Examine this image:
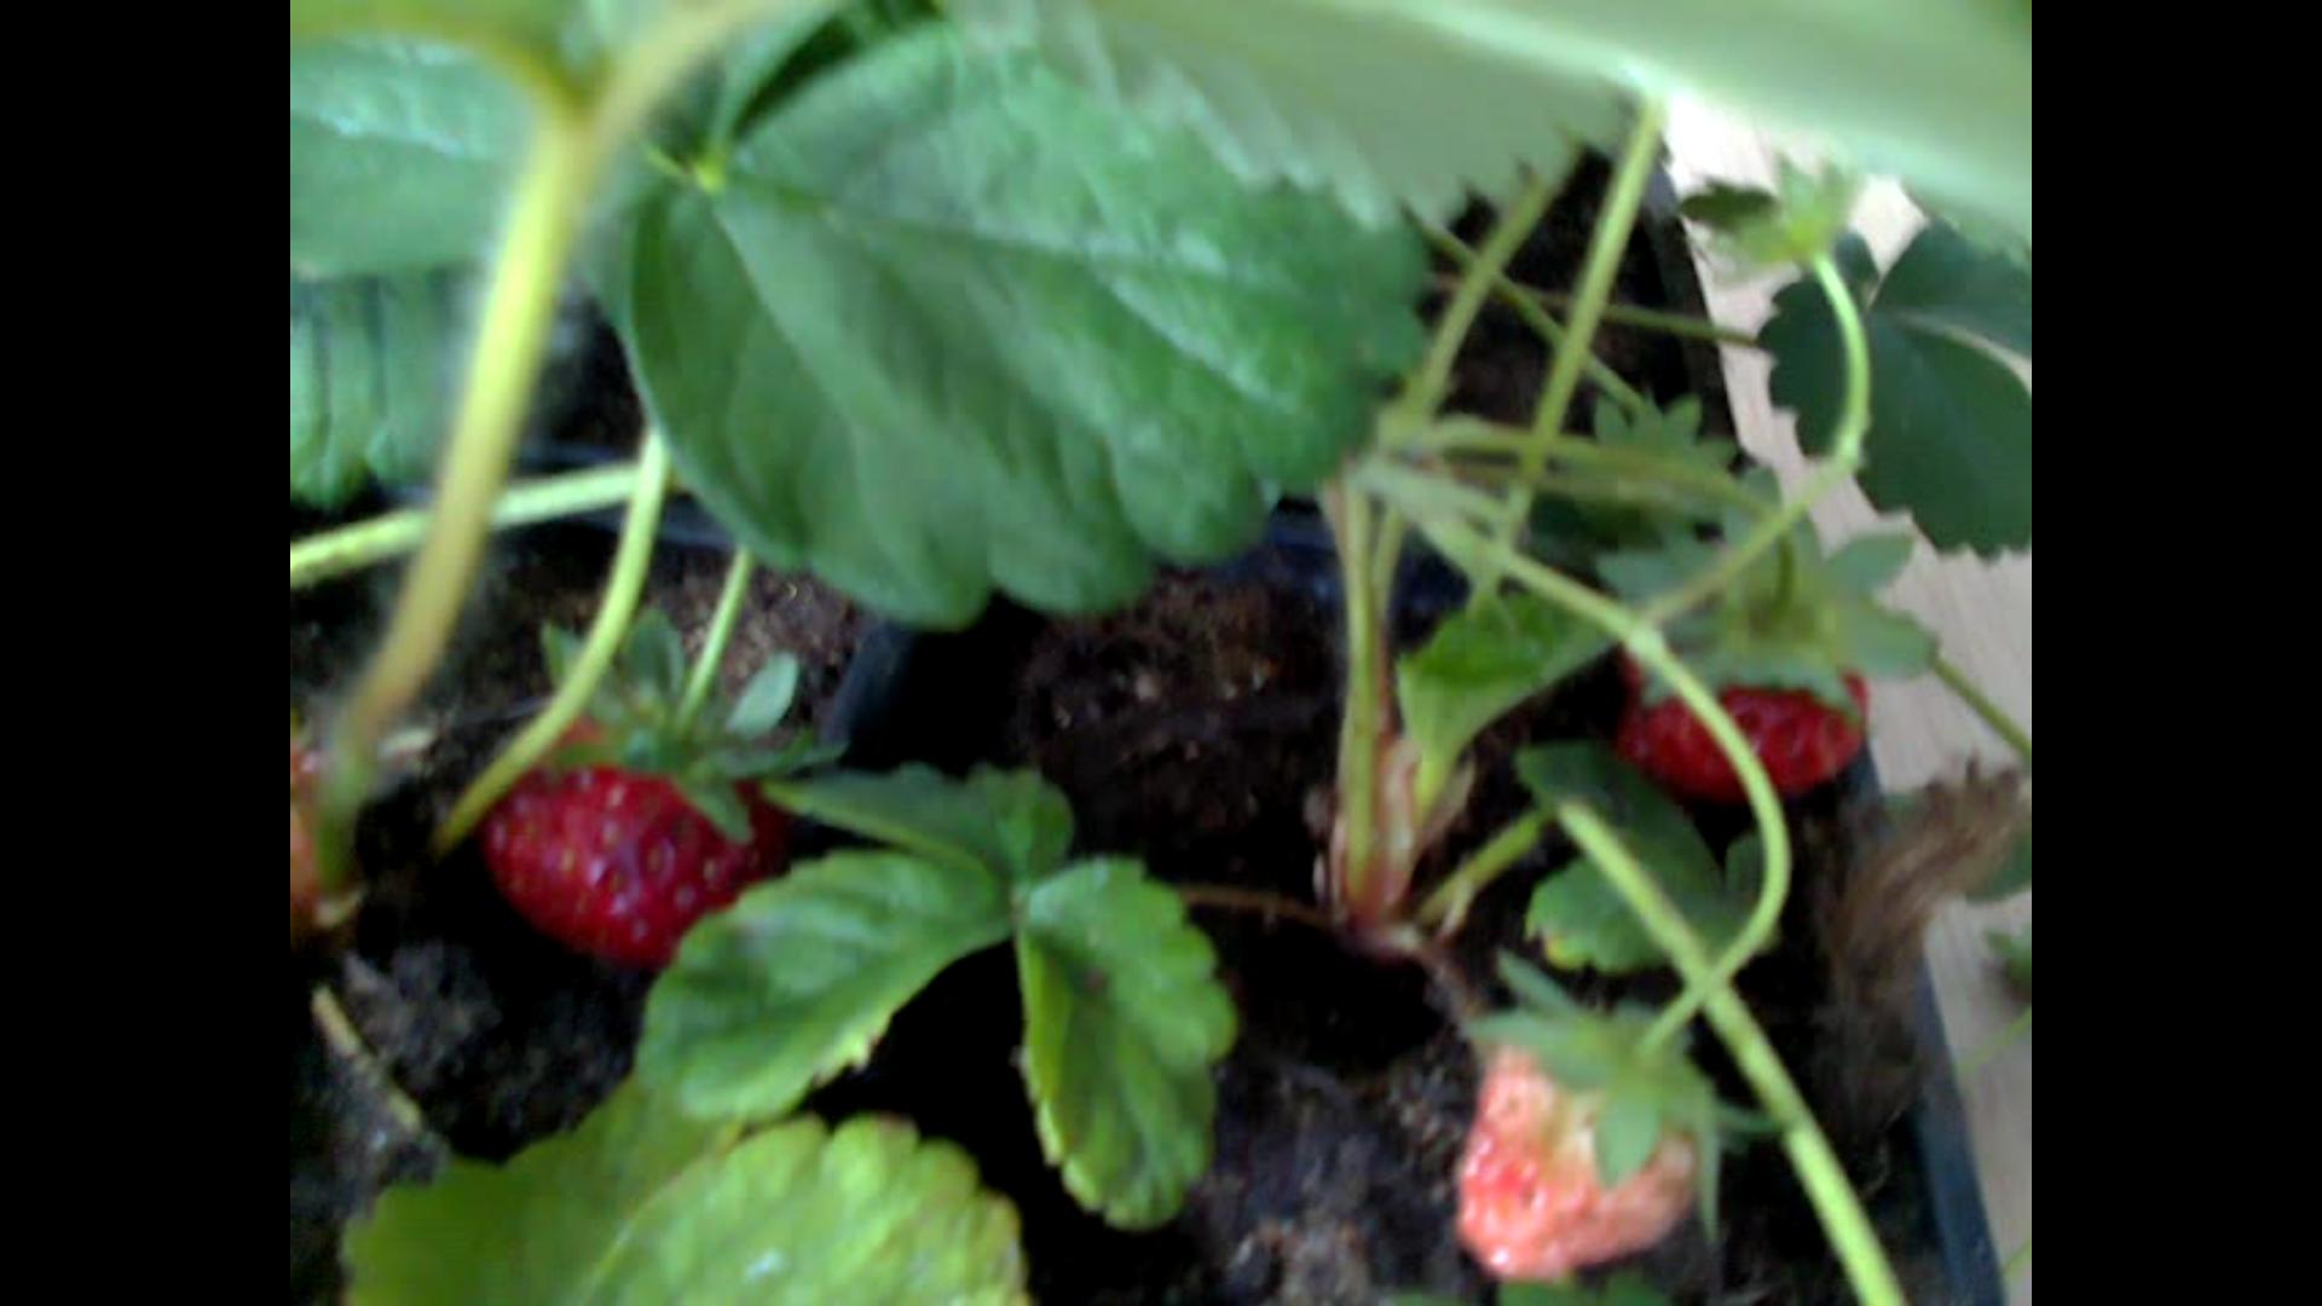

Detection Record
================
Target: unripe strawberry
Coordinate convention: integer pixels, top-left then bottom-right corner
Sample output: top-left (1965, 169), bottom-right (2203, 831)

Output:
top-left (1385, 966), bottom-right (1752, 1306)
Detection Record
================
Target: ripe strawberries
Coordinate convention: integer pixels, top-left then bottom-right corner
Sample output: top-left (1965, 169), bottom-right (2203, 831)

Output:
top-left (1628, 608), bottom-right (1915, 781)
top-left (441, 715), bottom-right (819, 950)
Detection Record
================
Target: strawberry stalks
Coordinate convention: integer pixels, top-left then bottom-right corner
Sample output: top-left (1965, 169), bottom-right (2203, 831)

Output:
top-left (1631, 819), bottom-right (1804, 1157)
top-left (1692, 464), bottom-right (1873, 701)
top-left (588, 547), bottom-right (807, 836)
